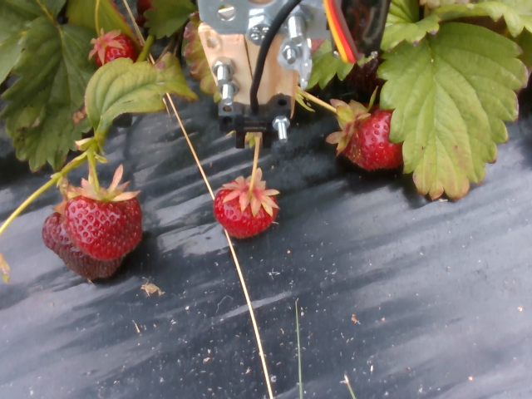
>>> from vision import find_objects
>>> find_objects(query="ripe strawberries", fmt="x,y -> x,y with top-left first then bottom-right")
92,30 -> 131,69
347,107 -> 416,165
74,191 -> 138,252
43,208 -> 119,285
217,179 -> 273,239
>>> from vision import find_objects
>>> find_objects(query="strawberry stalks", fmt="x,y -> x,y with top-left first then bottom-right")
291,90 -> 367,133
85,139 -> 111,202
245,130 -> 266,213
92,0 -> 108,51
51,169 -> 81,208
